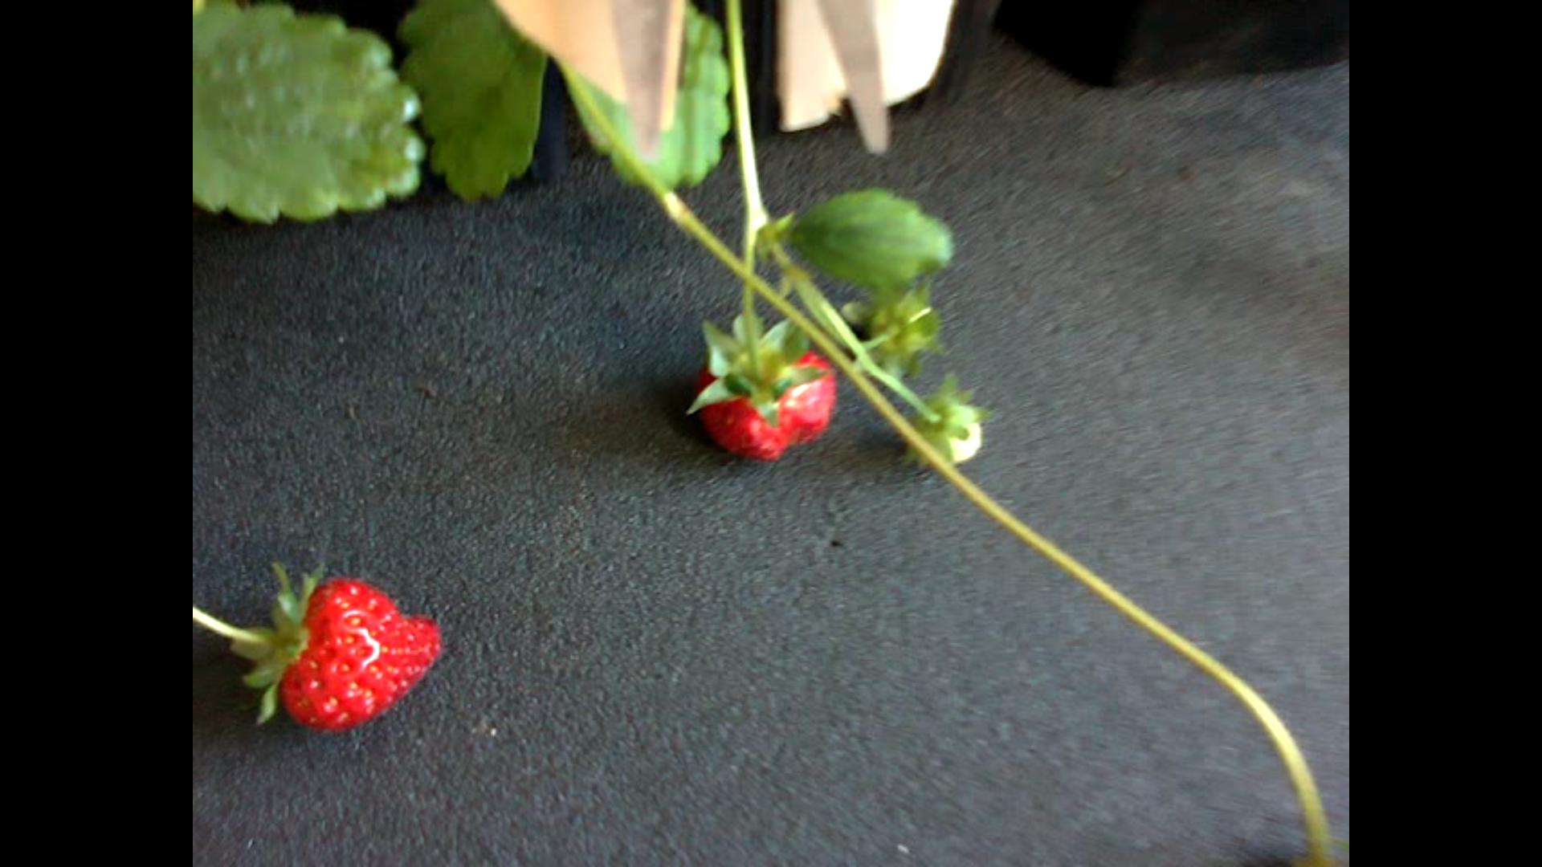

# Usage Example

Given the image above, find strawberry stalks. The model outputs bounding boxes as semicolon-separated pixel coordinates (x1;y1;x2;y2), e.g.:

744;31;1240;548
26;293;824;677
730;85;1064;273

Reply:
740;273;800;402
893;358;956;430
188;592;327;672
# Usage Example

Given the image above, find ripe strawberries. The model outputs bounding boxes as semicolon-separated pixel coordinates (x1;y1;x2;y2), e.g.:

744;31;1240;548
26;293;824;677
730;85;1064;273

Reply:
266;582;506;746
664;329;846;469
